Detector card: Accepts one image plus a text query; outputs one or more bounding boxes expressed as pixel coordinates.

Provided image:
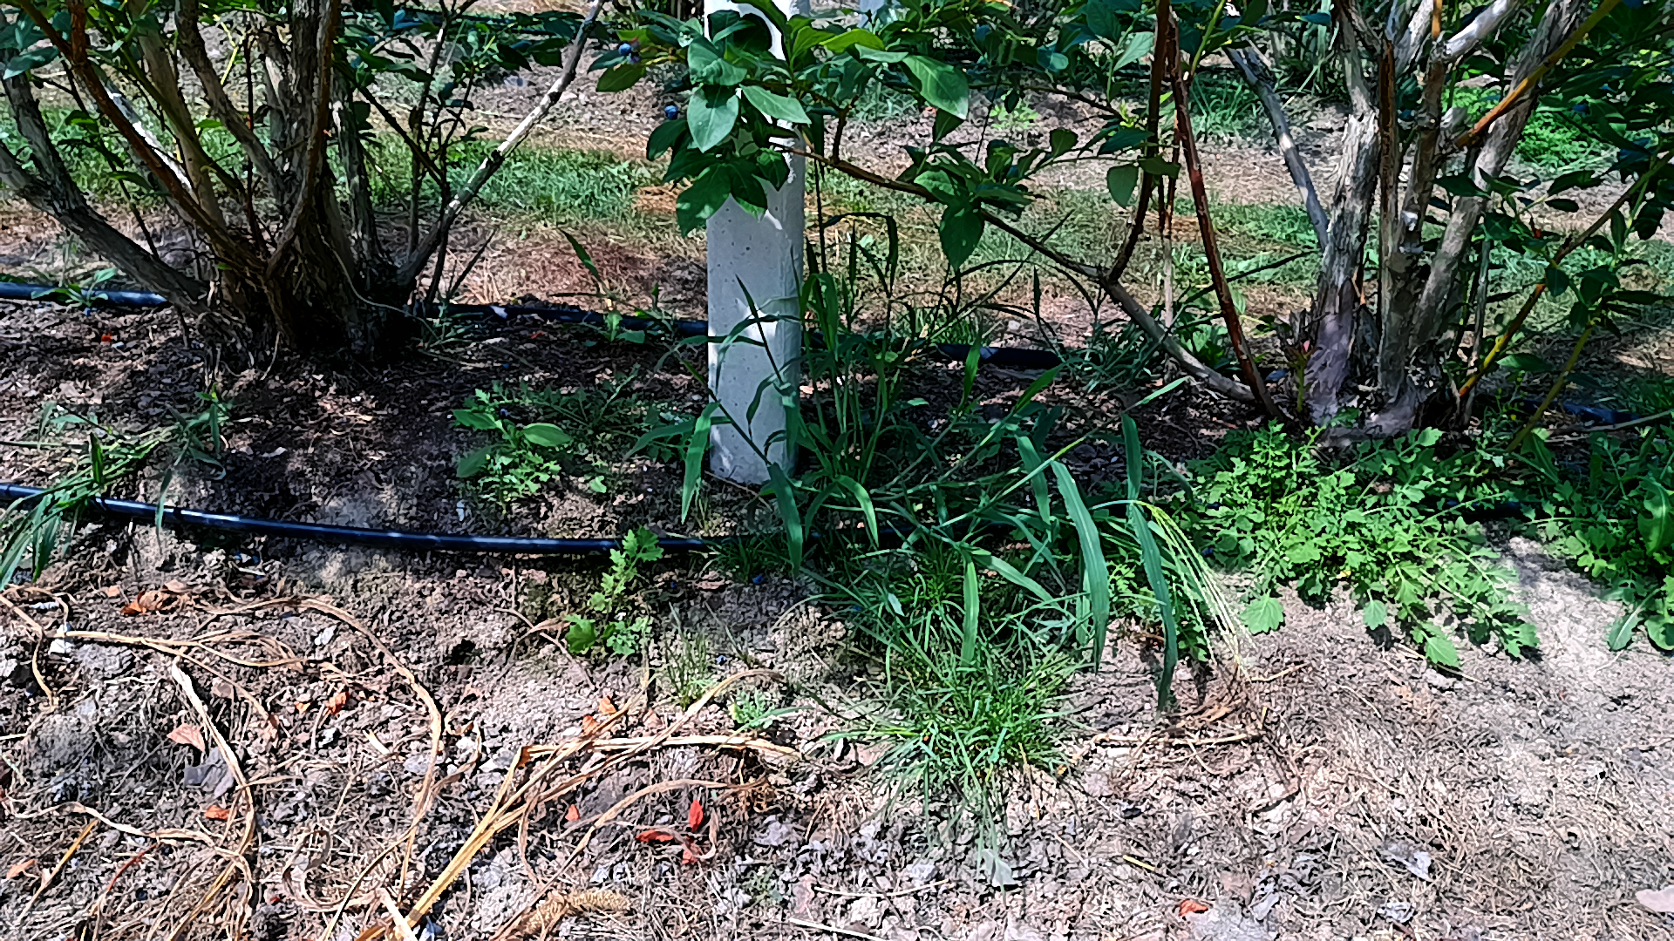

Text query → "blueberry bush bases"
[1153,247,1596,542]
[69,134,506,450]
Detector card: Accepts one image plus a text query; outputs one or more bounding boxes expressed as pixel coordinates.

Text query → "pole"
[680,189,819,509]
